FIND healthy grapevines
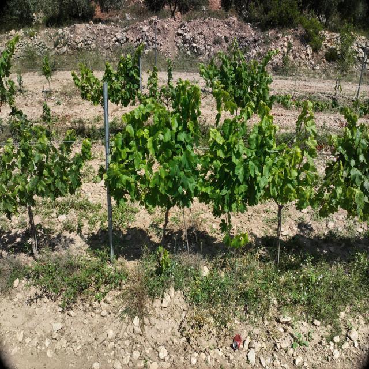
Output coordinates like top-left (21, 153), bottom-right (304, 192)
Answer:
top-left (99, 94), bottom-right (205, 264)
top-left (205, 99), bottom-right (369, 277)
top-left (0, 126), bottom-right (93, 268)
